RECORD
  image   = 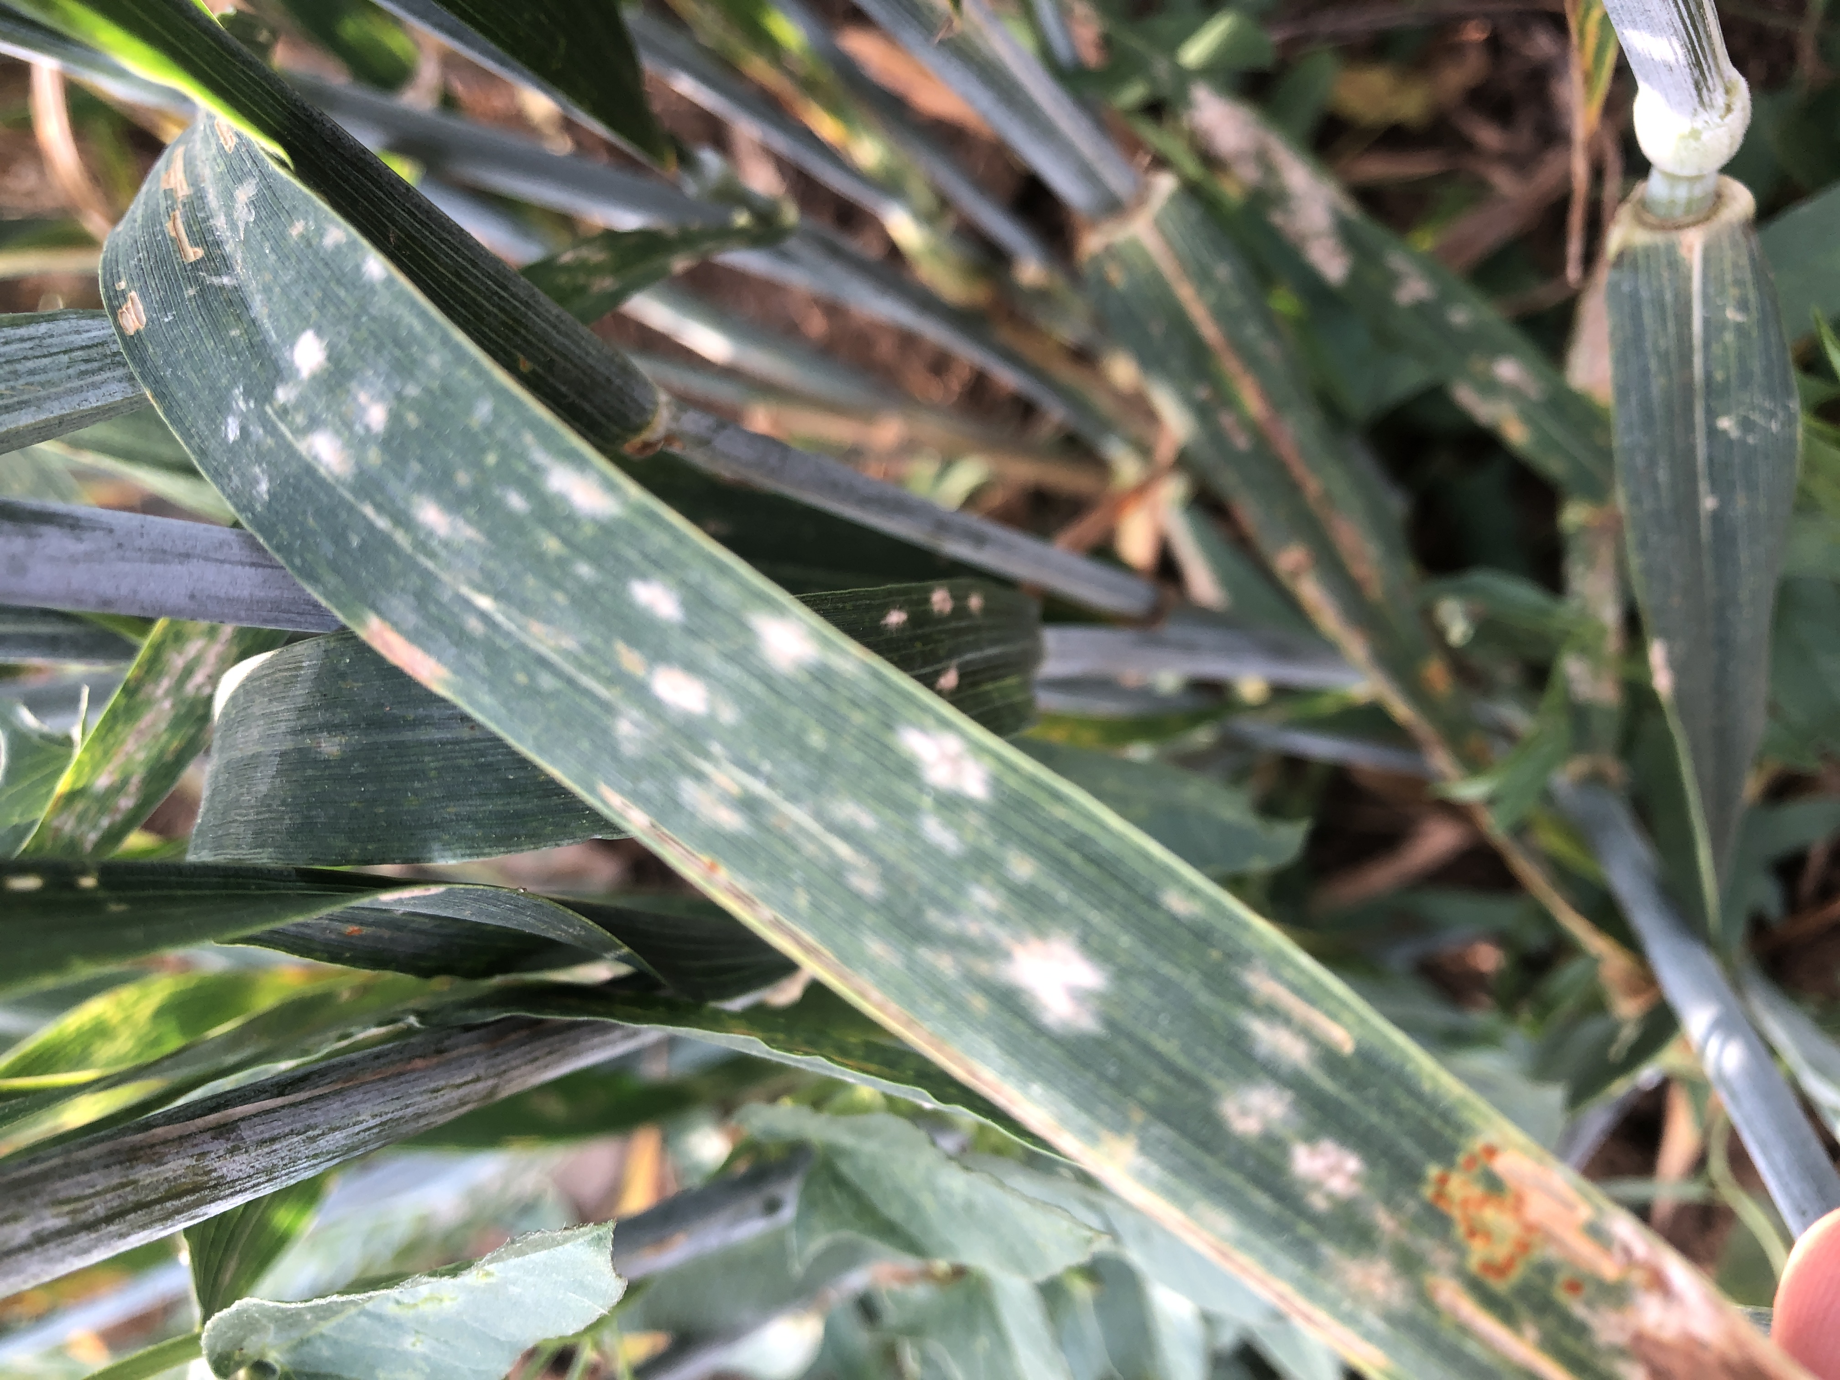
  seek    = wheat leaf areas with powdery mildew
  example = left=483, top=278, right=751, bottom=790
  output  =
left=883, top=549, right=1045, bottom=721
left=3, top=830, right=146, bottom=944
left=1119, top=57, right=1603, bottom=450
left=1624, top=226, right=1811, bottom=817
left=102, top=102, right=1689, bottom=1360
